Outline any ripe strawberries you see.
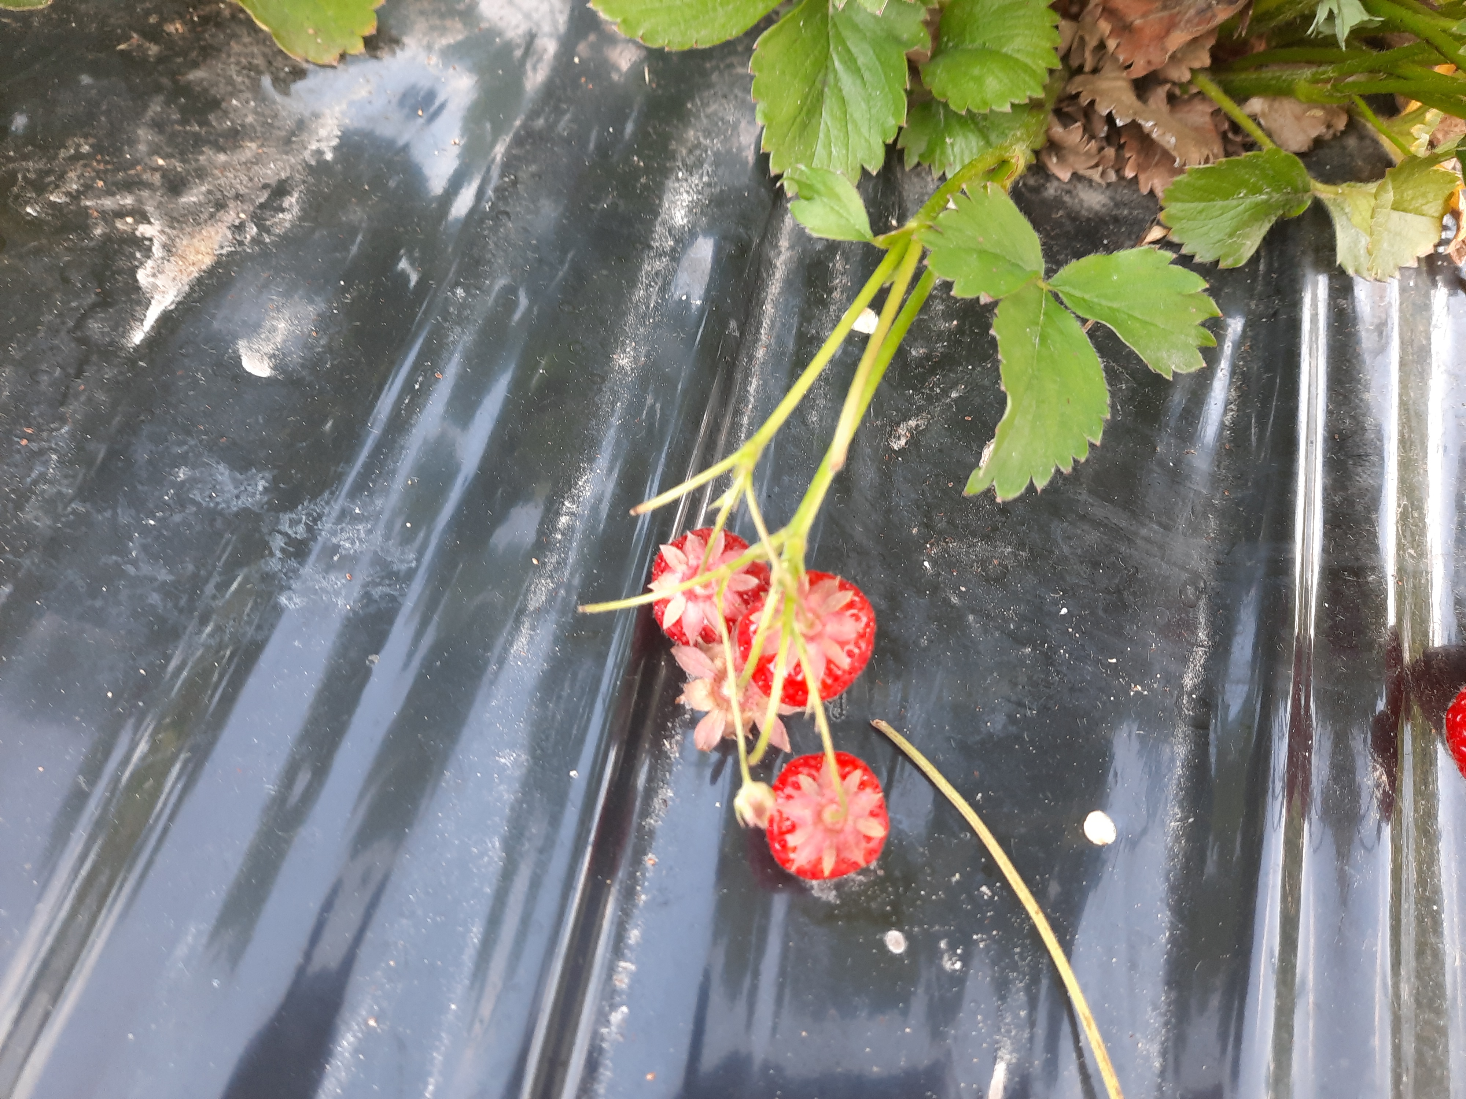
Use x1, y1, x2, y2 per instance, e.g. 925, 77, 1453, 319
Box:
637, 531, 769, 648
765, 751, 887, 884
733, 568, 892, 709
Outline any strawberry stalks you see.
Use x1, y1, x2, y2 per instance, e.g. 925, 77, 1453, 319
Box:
672, 476, 747, 600
734, 502, 830, 645
773, 633, 860, 838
